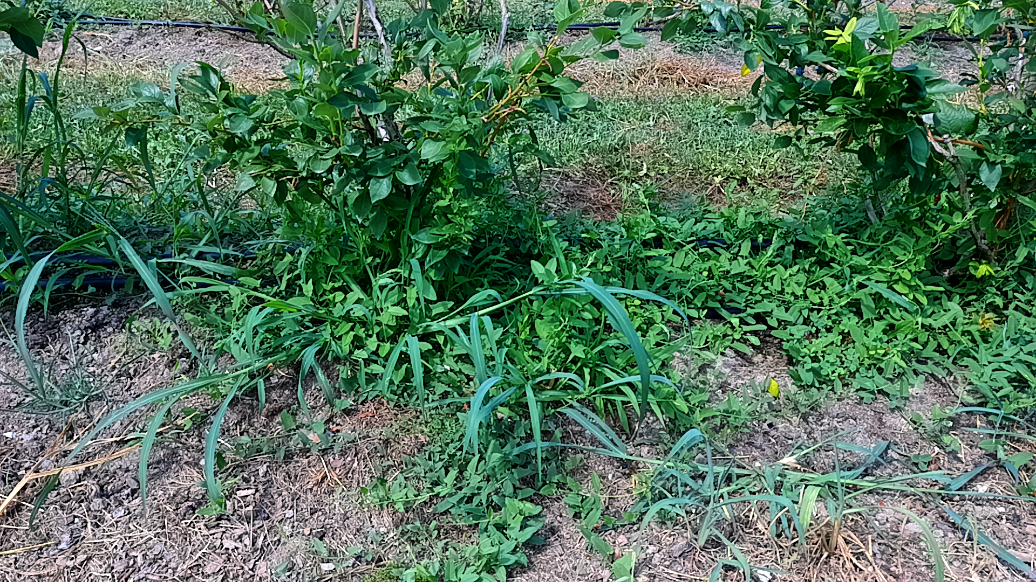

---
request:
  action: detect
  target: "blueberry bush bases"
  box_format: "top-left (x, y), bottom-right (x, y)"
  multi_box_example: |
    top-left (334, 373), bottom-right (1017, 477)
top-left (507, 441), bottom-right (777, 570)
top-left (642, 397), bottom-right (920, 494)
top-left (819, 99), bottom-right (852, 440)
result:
top-left (291, 67), bottom-right (516, 338)
top-left (908, 130), bottom-right (1036, 335)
